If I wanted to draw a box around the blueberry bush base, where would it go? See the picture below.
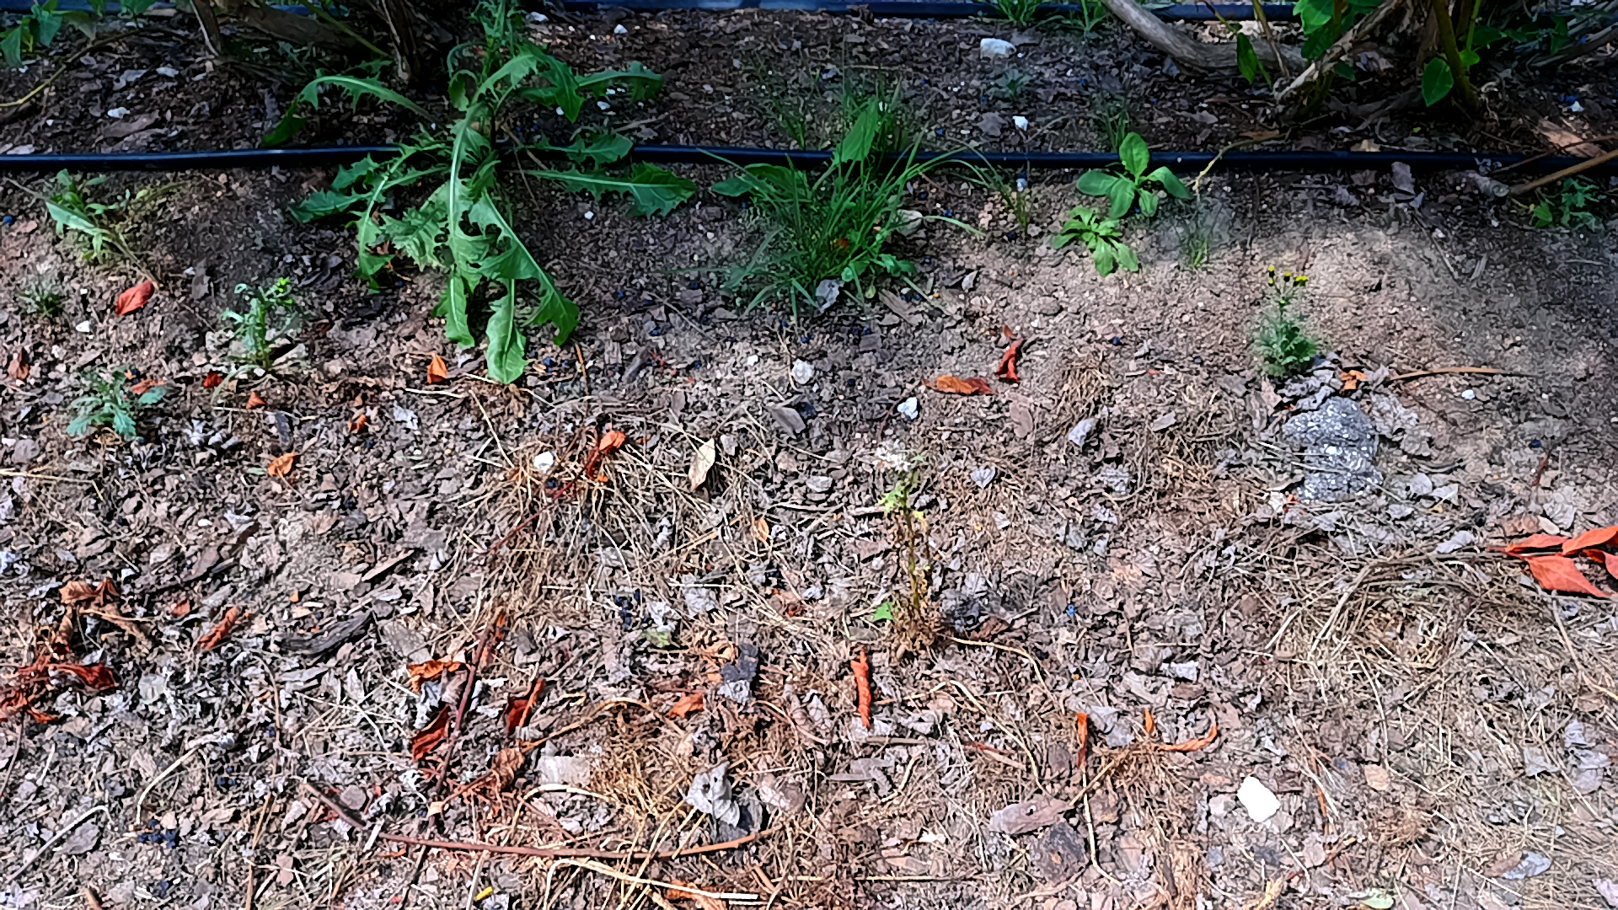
[1170,0,1610,237]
